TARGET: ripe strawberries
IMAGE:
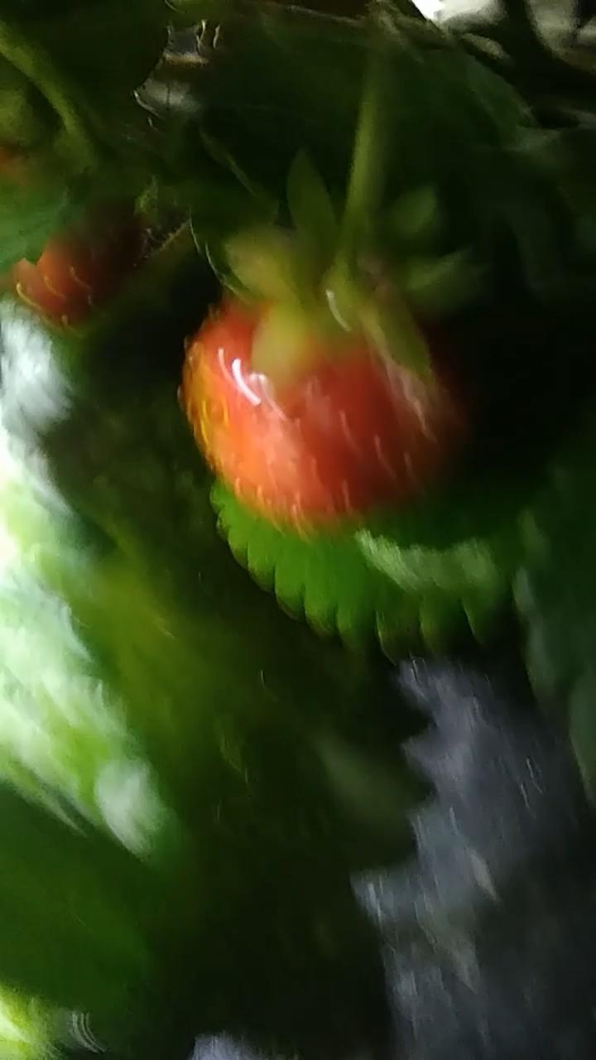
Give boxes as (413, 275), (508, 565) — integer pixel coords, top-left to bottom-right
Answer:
(0, 174), (140, 341)
(183, 263), (470, 542)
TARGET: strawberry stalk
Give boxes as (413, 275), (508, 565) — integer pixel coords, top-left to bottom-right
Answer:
(301, 72), (396, 365)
